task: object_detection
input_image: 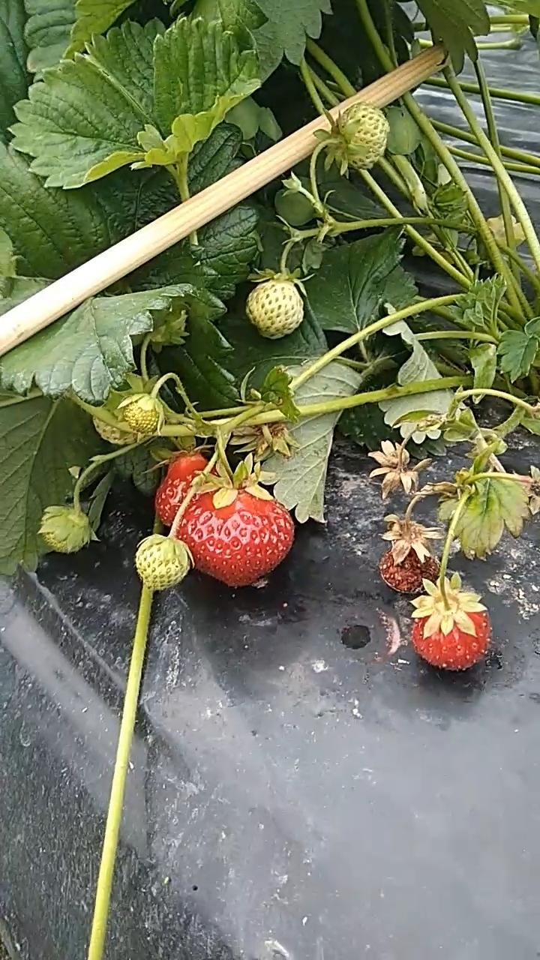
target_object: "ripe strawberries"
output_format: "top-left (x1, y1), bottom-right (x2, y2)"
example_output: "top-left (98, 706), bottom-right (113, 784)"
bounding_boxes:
top-left (408, 596), bottom-right (505, 674)
top-left (153, 452), bottom-right (228, 528)
top-left (178, 489), bottom-right (297, 593)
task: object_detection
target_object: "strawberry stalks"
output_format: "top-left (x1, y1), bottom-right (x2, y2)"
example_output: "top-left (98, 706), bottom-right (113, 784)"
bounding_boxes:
top-left (268, 223), bottom-right (301, 293)
top-left (68, 459), bottom-right (93, 522)
top-left (147, 360), bottom-right (173, 411)
top-left (395, 478), bottom-right (435, 561)
top-left (428, 494), bottom-right (472, 626)
top-left (303, 115), bottom-right (352, 159)
top-left (163, 483), bottom-right (194, 560)
top-left (214, 431), bottom-right (248, 504)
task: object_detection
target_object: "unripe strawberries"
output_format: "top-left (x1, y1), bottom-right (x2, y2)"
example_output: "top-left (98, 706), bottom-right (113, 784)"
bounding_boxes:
top-left (336, 102), bottom-right (396, 173)
top-left (133, 537), bottom-right (186, 588)
top-left (41, 509), bottom-right (92, 556)
top-left (126, 391), bottom-right (163, 441)
top-left (376, 530), bottom-right (440, 602)
top-left (87, 382), bottom-right (144, 450)
top-left (242, 276), bottom-right (305, 343)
